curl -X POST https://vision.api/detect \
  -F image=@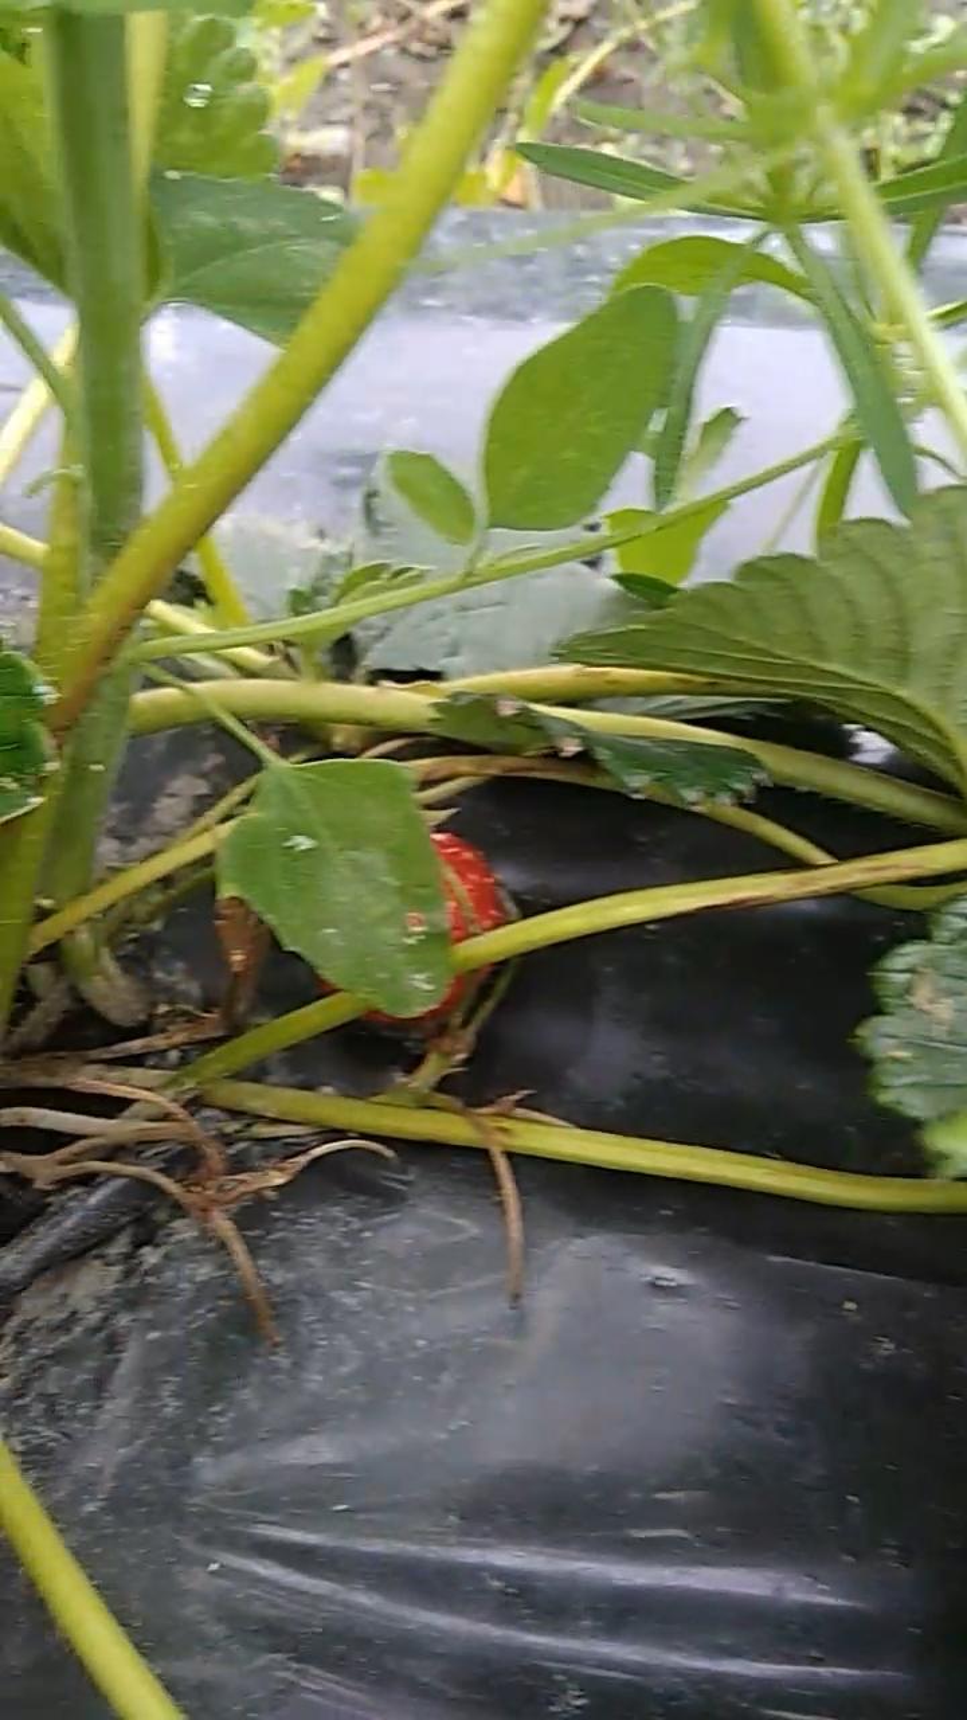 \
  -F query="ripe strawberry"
[282,814,528,1060]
